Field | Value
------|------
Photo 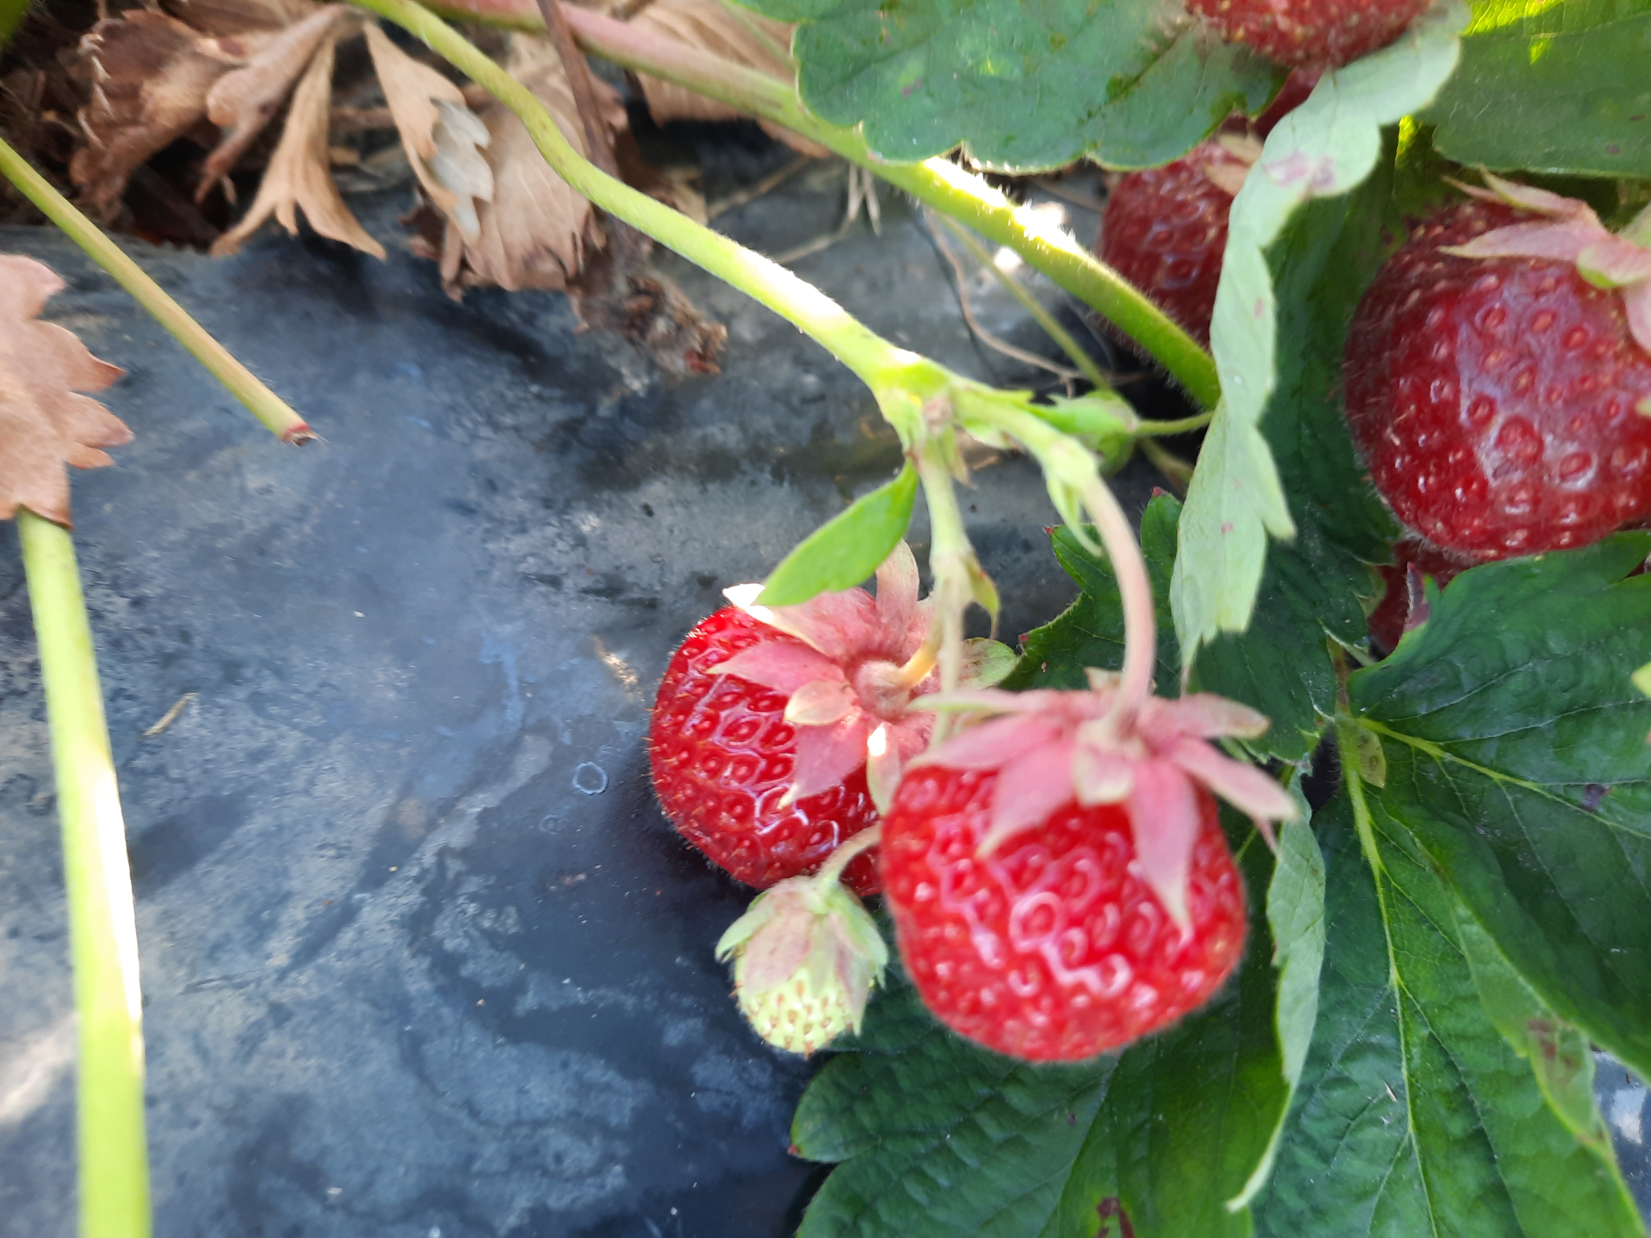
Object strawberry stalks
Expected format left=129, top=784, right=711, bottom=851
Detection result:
left=806, top=823, right=902, bottom=902
left=1031, top=473, right=1165, bottom=805
left=835, top=481, right=984, bottom=724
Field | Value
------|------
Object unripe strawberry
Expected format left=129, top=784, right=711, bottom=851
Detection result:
left=737, top=879, right=882, bottom=1055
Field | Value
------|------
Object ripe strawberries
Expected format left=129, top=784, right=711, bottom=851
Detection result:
left=623, top=564, right=955, bottom=870
left=1340, top=198, right=1651, bottom=558
left=867, top=700, right=1245, bottom=1043
left=1103, top=132, right=1287, bottom=345
left=1181, top=6, right=1441, bottom=129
